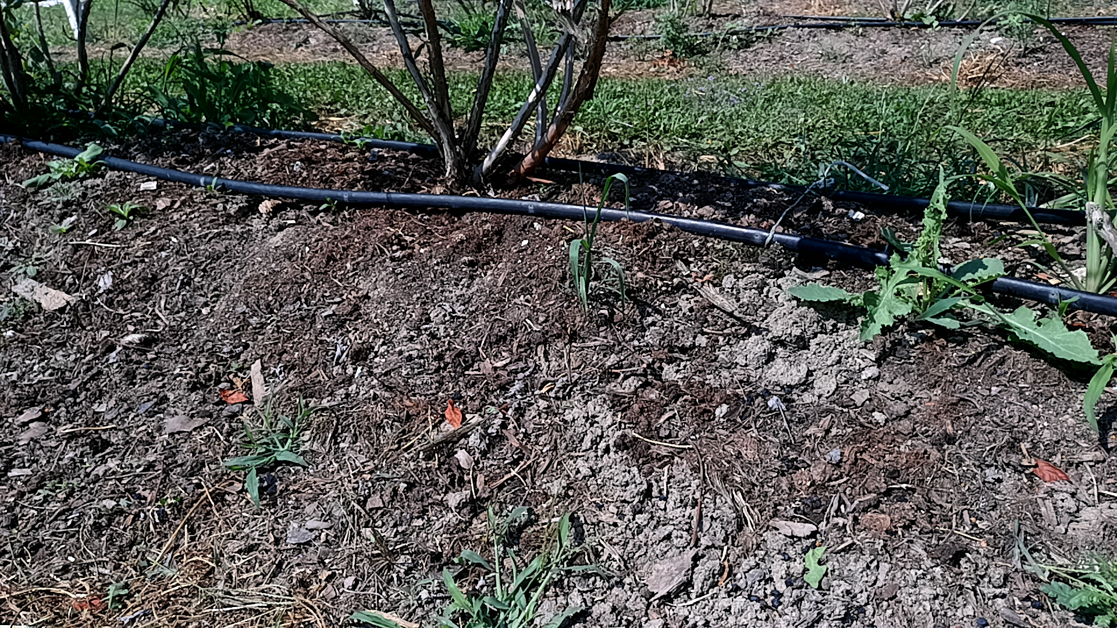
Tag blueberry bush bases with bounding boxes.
[5,48,150,161]
[873,3,967,34]
[388,85,599,224]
